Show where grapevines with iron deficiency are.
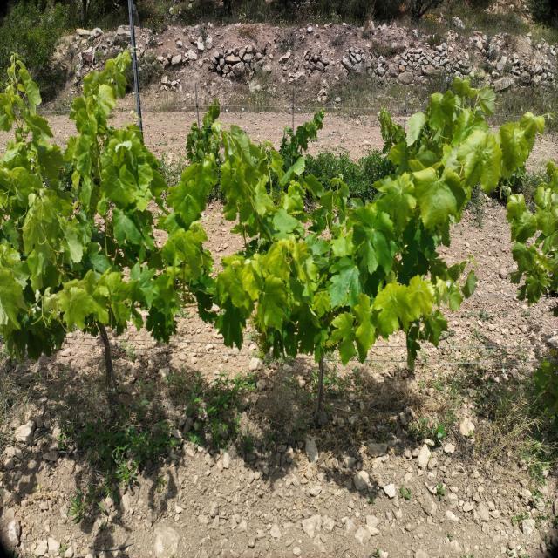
[201,99,531,448]
[0,55,209,420]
